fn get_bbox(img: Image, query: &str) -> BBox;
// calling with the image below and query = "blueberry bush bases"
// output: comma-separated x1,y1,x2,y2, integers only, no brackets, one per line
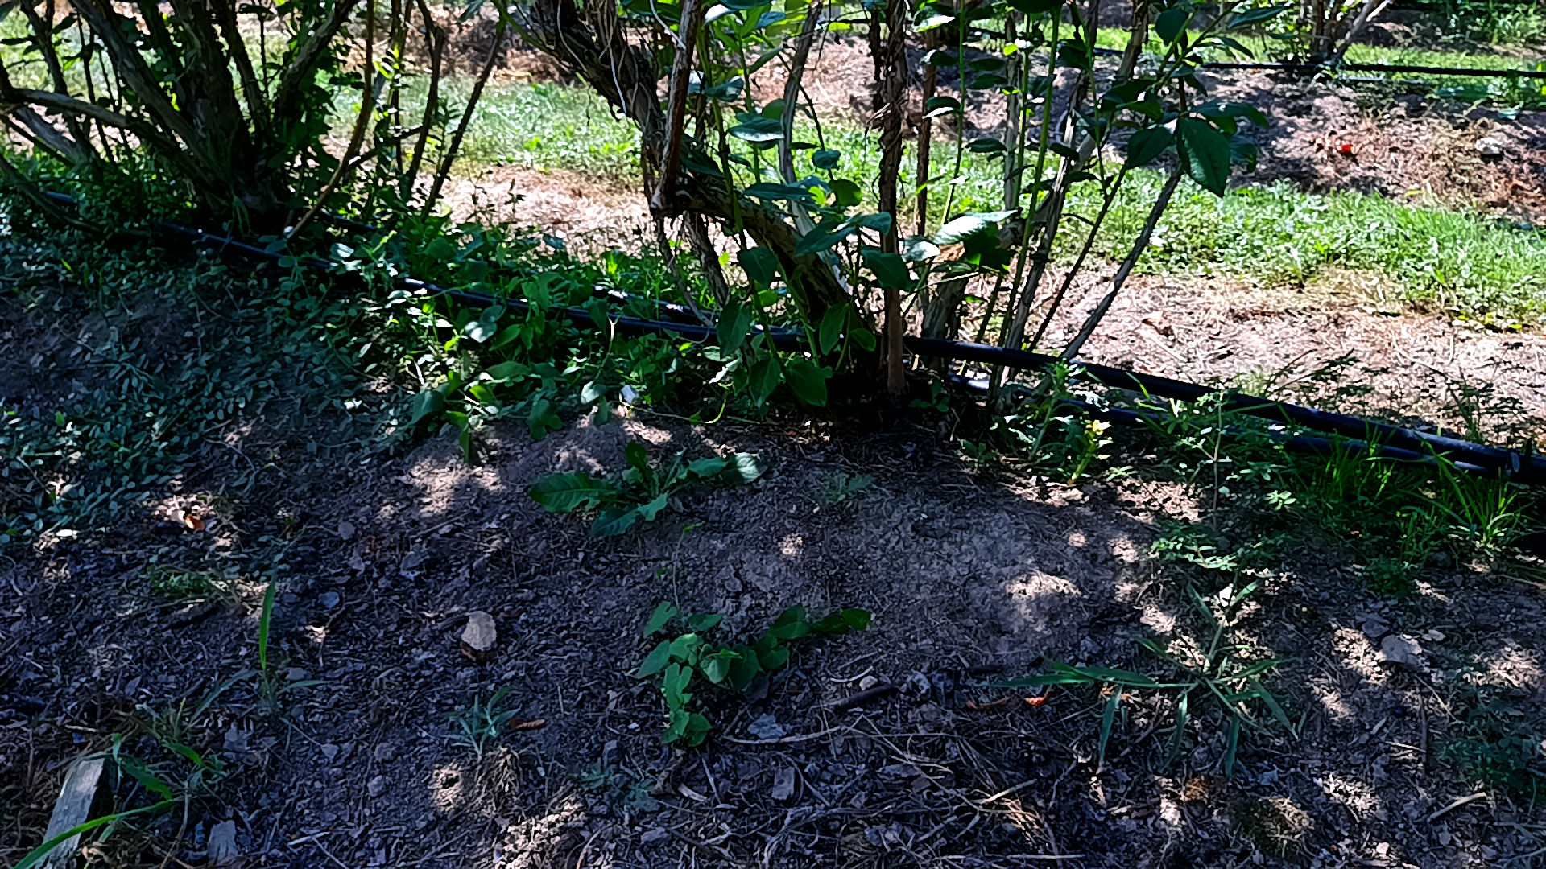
640,74,1136,534
20,43,435,360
